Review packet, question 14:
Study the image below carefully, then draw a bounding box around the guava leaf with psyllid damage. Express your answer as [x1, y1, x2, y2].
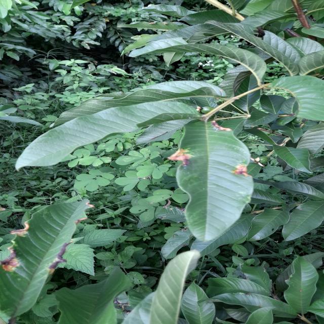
[160, 114, 261, 248]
